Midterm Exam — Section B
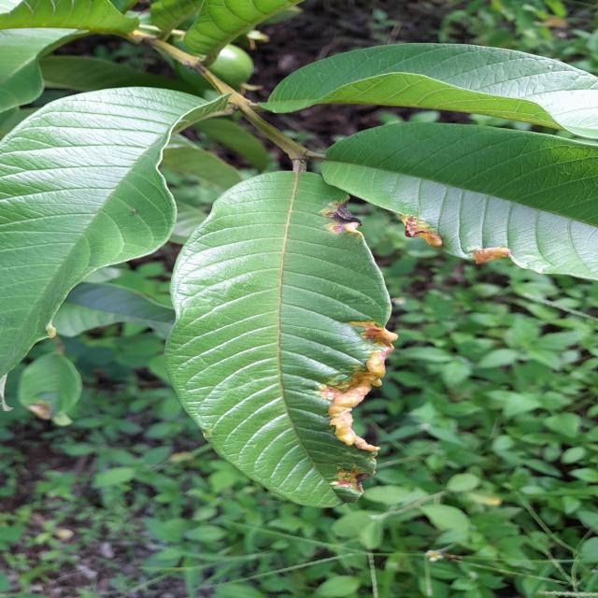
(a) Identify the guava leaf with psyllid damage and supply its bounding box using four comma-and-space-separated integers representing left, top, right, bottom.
165, 164, 427, 526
